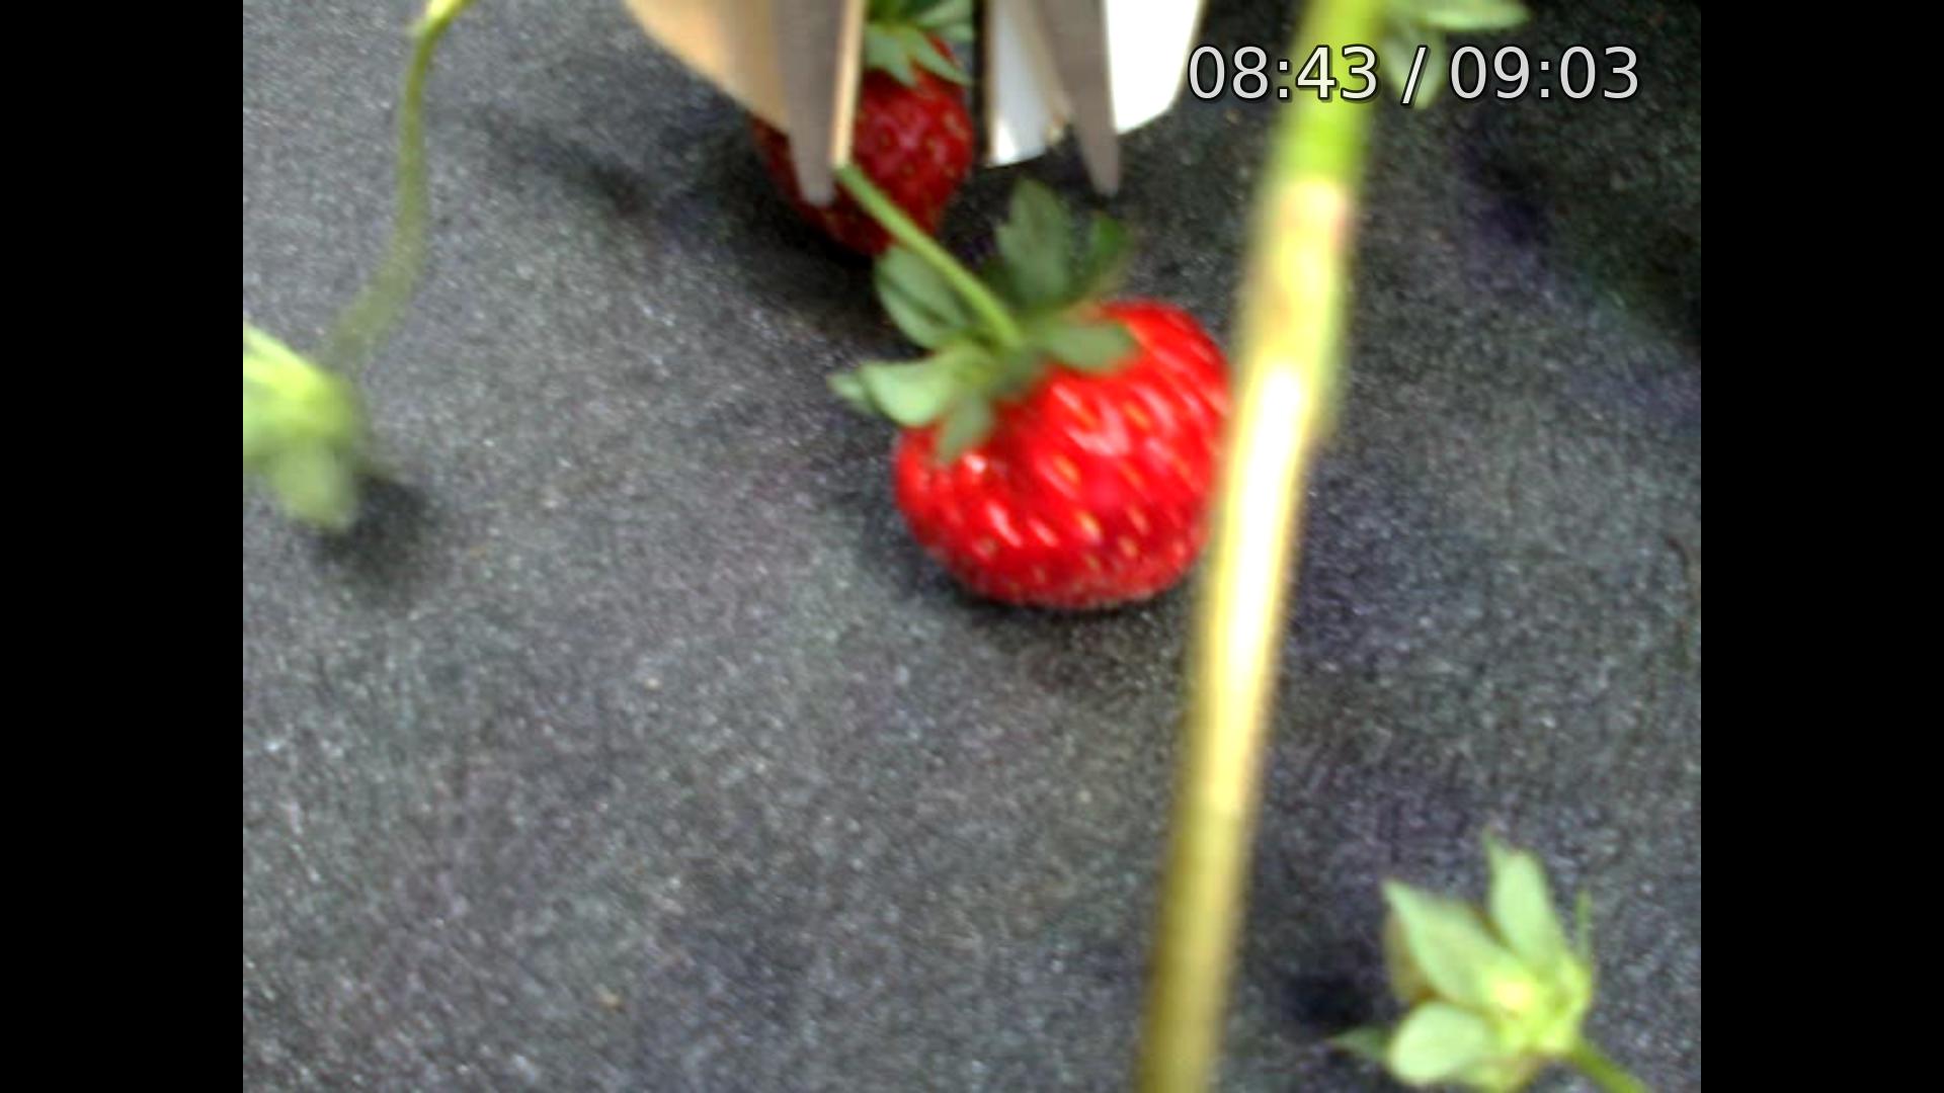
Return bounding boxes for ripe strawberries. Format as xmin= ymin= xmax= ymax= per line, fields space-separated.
xmin=784 ymin=23 xmax=993 ymax=231
xmin=839 ymin=288 xmax=1331 ymax=613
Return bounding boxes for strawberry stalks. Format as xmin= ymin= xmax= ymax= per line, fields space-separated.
xmin=277 ymin=228 xmax=450 ymax=394
xmin=820 ymin=156 xmax=1093 ymax=378
xmin=1474 ymin=979 xmax=1655 ymax=1086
